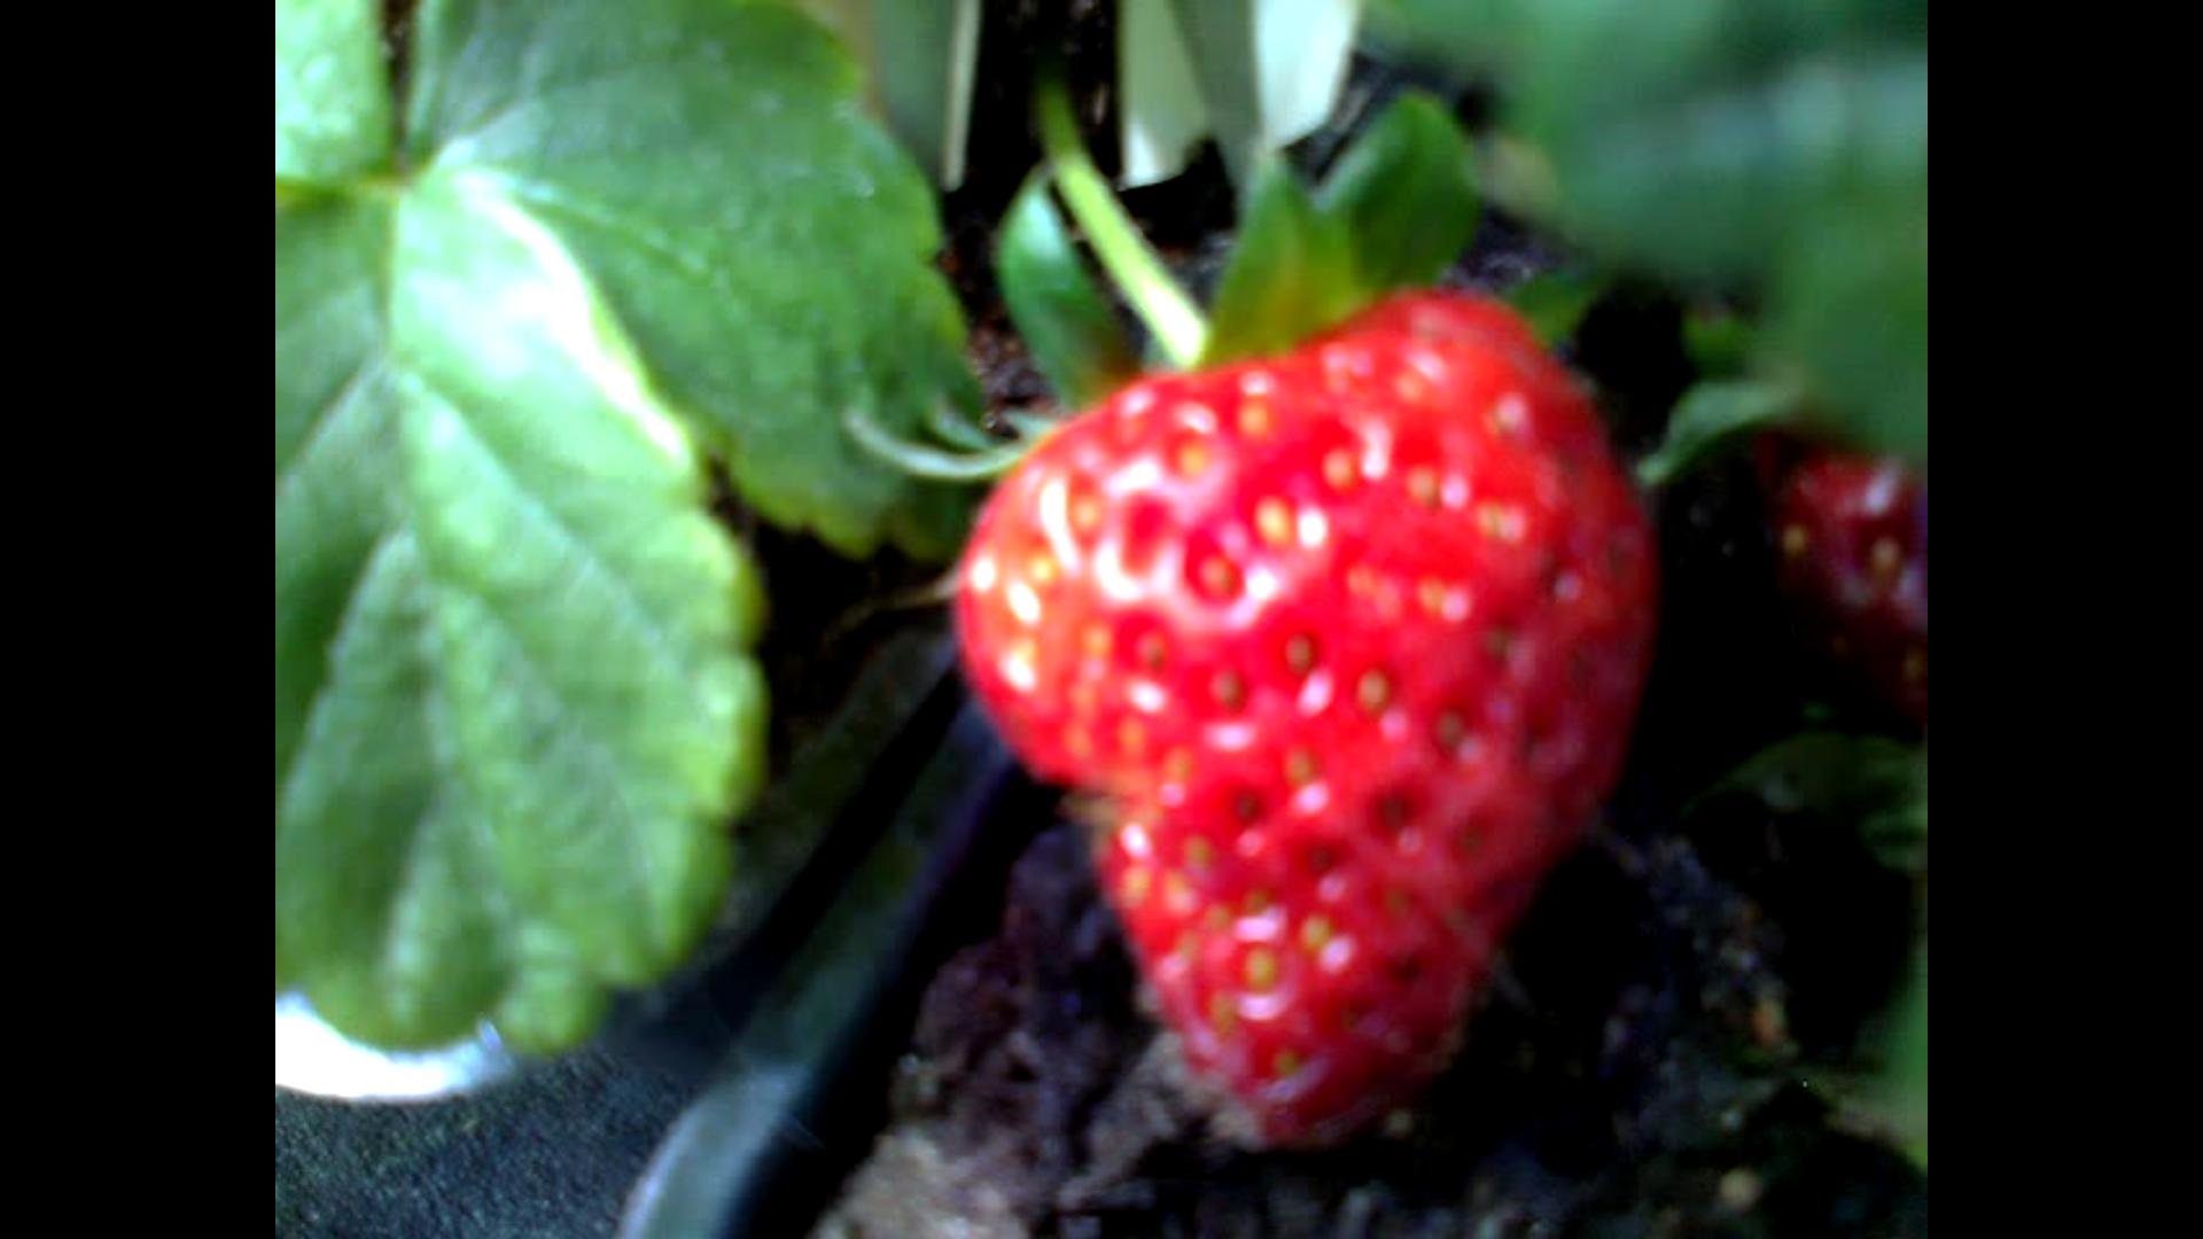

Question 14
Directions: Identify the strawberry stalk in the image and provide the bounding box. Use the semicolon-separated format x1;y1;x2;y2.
1021;29;1311;402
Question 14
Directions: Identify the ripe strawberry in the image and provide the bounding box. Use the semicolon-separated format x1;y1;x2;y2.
834;319;1677;1151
